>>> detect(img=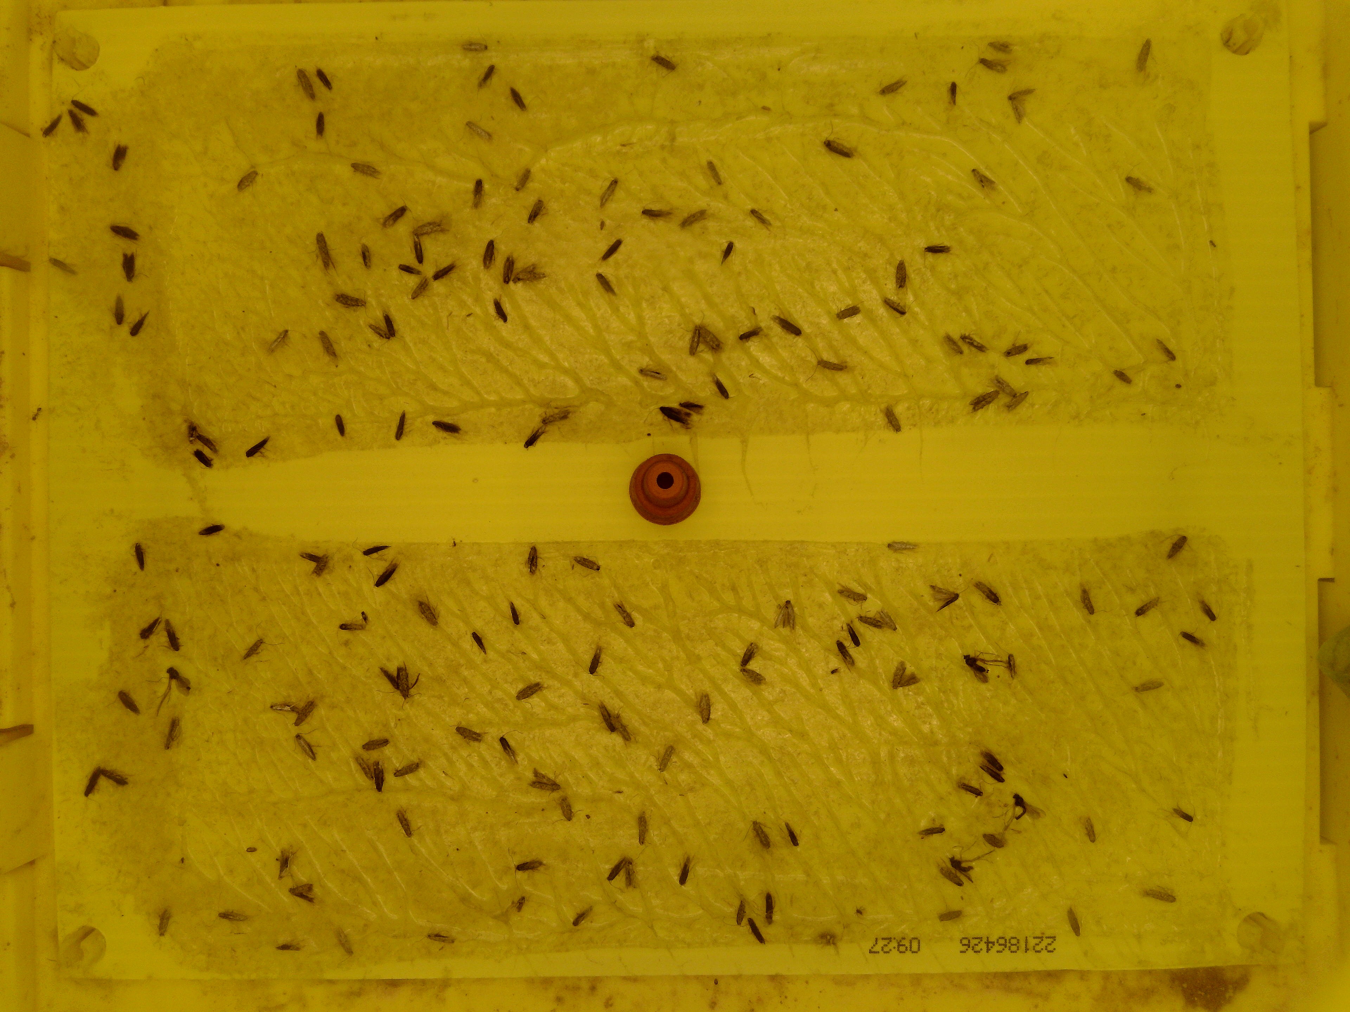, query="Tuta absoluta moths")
[289,690,315,726]
[393,411,413,442]
[923,244,951,256]
[92,769,126,790]
[1007,339,1034,358]
[72,95,107,118]
[501,251,517,283]
[783,821,806,853]
[109,290,125,329]
[879,296,907,314]
[601,240,625,263]
[737,642,760,674]
[767,597,799,629]
[1126,177,1158,200]
[164,723,185,754]
[154,908,171,936]
[1130,593,1160,618]
[336,617,365,638]
[331,926,362,953]
[559,792,571,830]
[1196,598,1220,630]
[983,748,1009,773]
[525,545,547,579]
[990,40,1015,55]
[740,918,773,944]
[597,704,639,748]
[982,58,1017,72]
[361,544,388,558]
[964,391,1001,414]
[403,224,422,265]
[132,545,151,575]
[291,75,319,107]
[333,292,367,314]
[262,324,290,361]
[62,111,91,138]
[289,892,332,912]
[1006,83,1037,104]
[516,680,546,703]
[465,119,492,145]
[839,622,862,647]
[609,603,634,631]
[313,110,330,141]
[1082,809,1104,834]
[835,640,858,671]
[634,809,655,845]
[635,363,671,383]
[396,810,420,840]
[1001,651,1020,682]
[457,37,492,57]
[243,435,275,462]
[964,328,987,353]
[1153,342,1175,362]
[303,557,340,583]
[1129,674,1167,692]
[1164,533,1191,563]
[511,260,542,285]
[861,608,903,635]
[211,906,251,929]
[880,408,902,435]
[676,847,694,890]
[475,65,495,94]
[766,310,808,337]
[731,321,765,349]
[472,177,487,218]
[958,779,982,800]
[1140,888,1183,909]
[192,446,214,467]
[820,135,860,161]
[929,866,964,892]
[307,68,336,90]
[694,692,717,727]
[146,625,182,649]
[708,159,724,190]
[492,297,511,327]
[993,370,1021,396]
[595,272,623,301]
[648,48,677,69]
[596,176,621,212]
[939,330,958,356]
[124,306,148,343]
[717,241,735,267]
[880,73,906,95]
[512,855,548,876]
[935,906,964,924]
[605,858,625,891]
[624,856,638,885]
[653,746,674,782]
[233,639,264,667]
[691,318,701,360]
[372,562,397,588]
[483,236,498,269]
[116,251,137,285]
[235,168,262,192]
[314,332,342,365]
[1080,586,1100,624]
[515,163,539,196]
[296,730,325,767]
[710,328,725,356]
[493,740,519,769]
[945,84,962,108]
[431,419,463,438]
[680,207,707,232]
[529,197,545,231]
[540,407,573,425]
[839,305,870,324]
[1177,632,1211,652]
[1024,356,1063,368]
[982,828,1012,850]
[108,222,143,244]
[378,205,411,230]
[406,596,440,622]
[762,892,776,923]
[449,726,487,748]
[587,643,607,681]
[895,261,912,295]
[420,929,453,947]
[369,757,385,793]
[117,689,138,718]
[192,432,221,449]
[965,165,997,197]
[505,603,525,631]
[512,82,528,113]
[915,817,948,839]
[109,139,128,172]
[331,412,353,441]
[348,164,383,181]
[395,268,421,281]
[430,261,459,282]
[564,904,594,935]
[886,539,915,560]
[571,557,603,576]
[639,203,682,223]
[750,207,775,229]
[370,663,398,696]
[709,375,734,406]
[976,579,1001,609]
[410,280,428,304]
[367,717,386,754]
[274,939,309,955]
[526,764,561,788]
[1070,901,1091,946]
[42,108,58,140]
[756,830,778,852]
[522,424,547,450]
[833,586,875,602]
[658,405,693,431]
[823,355,855,378]
[471,632,487,660]
[418,213,451,234]
[1170,803,1199,828]
[358,243,371,271]
[199,523,228,539]
[40,257,82,274]
[393,762,418,785]
[365,327,393,344]
[1131,37,1155,78]
[273,849,292,888]
[315,234,333,278]
[395,663,416,702]
[1012,387,1033,417]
